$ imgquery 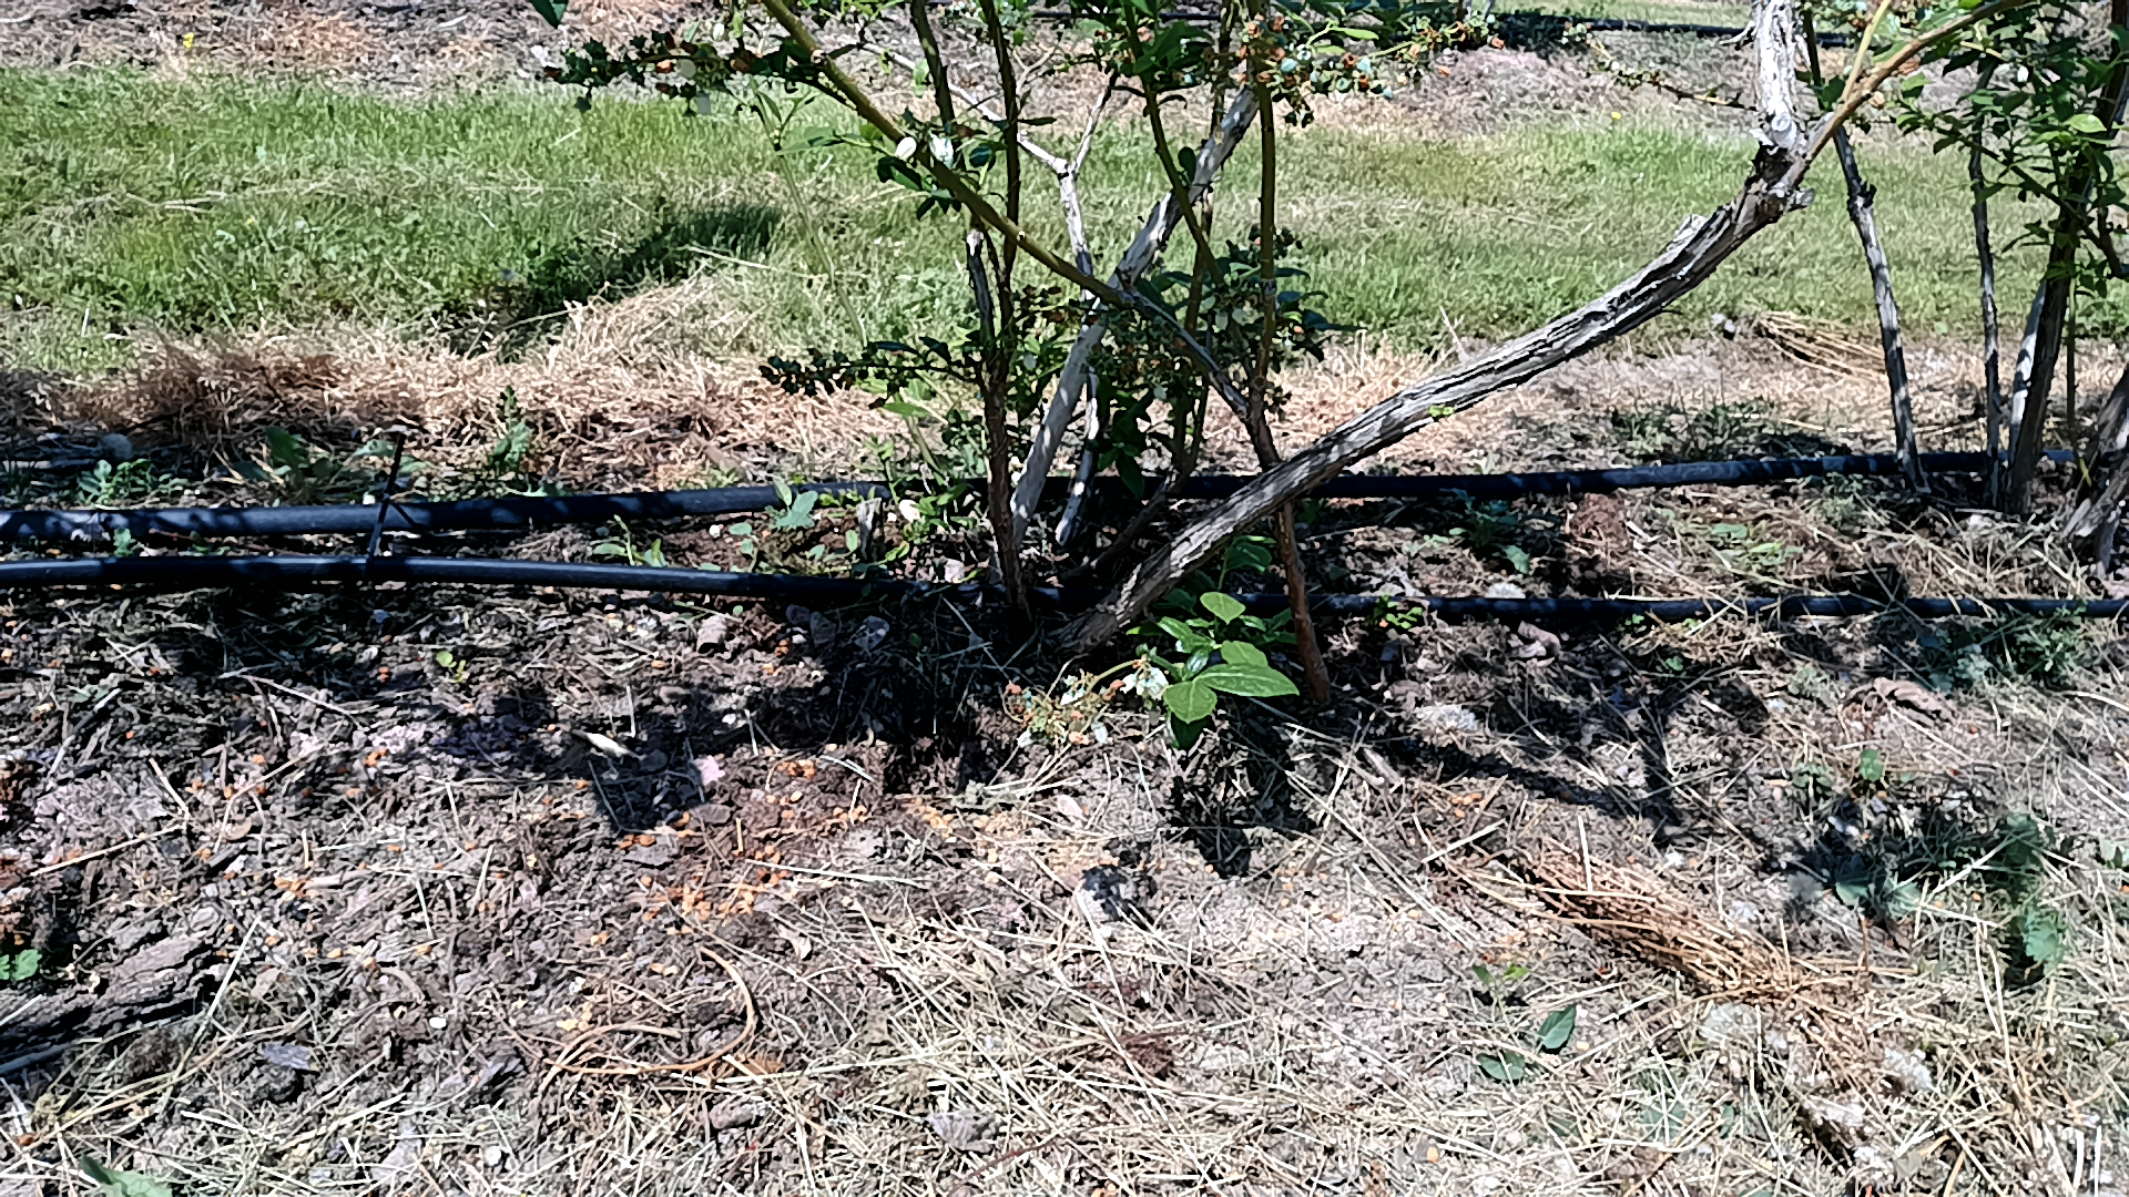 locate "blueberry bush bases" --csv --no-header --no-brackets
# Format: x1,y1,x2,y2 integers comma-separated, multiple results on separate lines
900,310,1316,754
1848,263,2128,607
